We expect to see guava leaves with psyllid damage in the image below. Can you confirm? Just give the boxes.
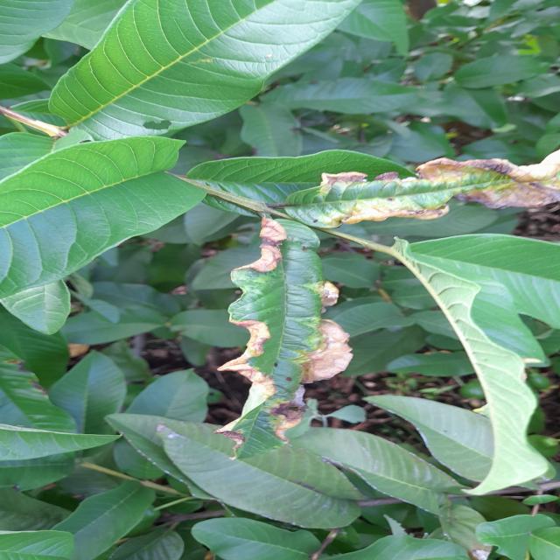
[259,151,560,233]
[222,212,362,473]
